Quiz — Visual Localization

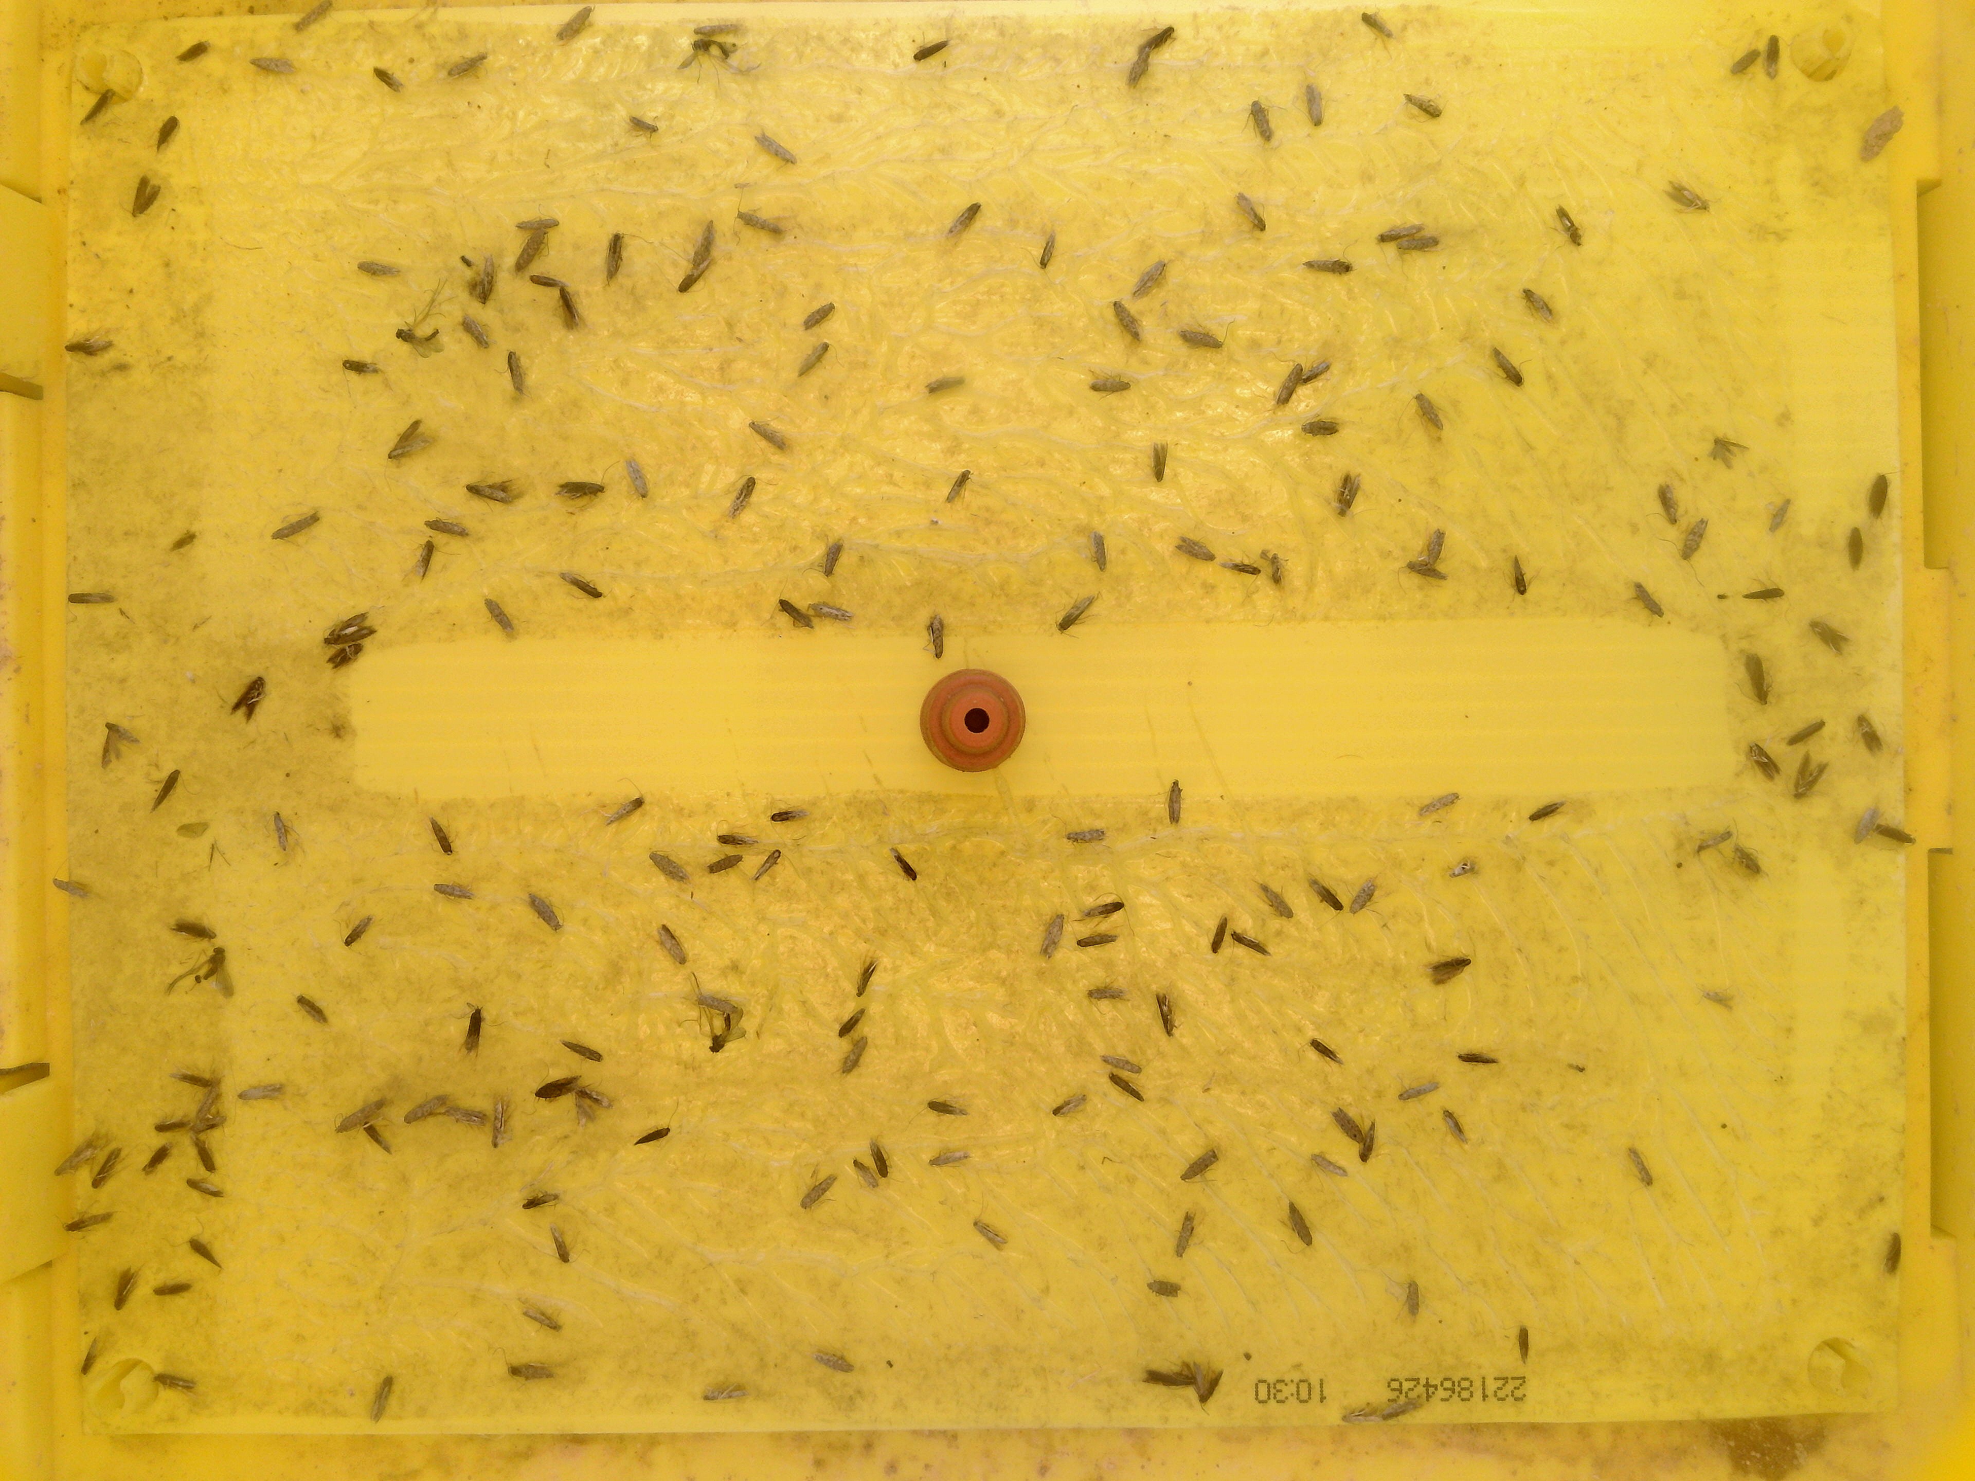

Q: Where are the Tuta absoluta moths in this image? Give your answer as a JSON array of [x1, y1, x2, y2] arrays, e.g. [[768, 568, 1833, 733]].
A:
[[1557, 205, 1585, 247], [946, 199, 987, 244], [1174, 317, 1226, 355], [235, 1077, 288, 1107], [292, 0, 336, 35], [1066, 821, 1116, 851], [326, 607, 374, 664], [1121, 60, 1153, 87], [1233, 192, 1267, 233], [1745, 652, 1778, 706], [727, 475, 756, 520], [812, 1345, 859, 1378], [136, 1144, 171, 1176], [747, 416, 789, 455], [1303, 80, 1331, 133], [1658, 481, 1681, 526], [368, 60, 402, 91], [1248, 97, 1276, 143], [361, 258, 399, 278], [1628, 1142, 1658, 1190], [296, 994, 335, 1032], [1253, 881, 1292, 920], [1148, 439, 1171, 483], [170, 527, 211, 565], [1728, 42, 1764, 80], [923, 1143, 968, 1172], [1088, 380, 1135, 397], [1360, 10, 1401, 49], [766, 807, 810, 830], [944, 467, 972, 505], [509, 357, 533, 400], [711, 824, 756, 847], [243, 57, 293, 76], [919, 611, 940, 656], [1506, 558, 1529, 605], [690, 989, 748, 1027], [779, 597, 815, 640], [532, 265, 580, 294], [61, 1210, 117, 1234], [1376, 220, 1428, 245], [852, 955, 876, 998], [852, 1156, 883, 1194], [1868, 821, 1925, 852], [435, 872, 470, 905], [102, 712, 132, 772], [1859, 713, 1898, 757], [392, 420, 429, 465], [1306, 1037, 1342, 1071], [75, 1338, 92, 1387], [1349, 878, 1381, 919], [1884, 1238, 1909, 1274], [185, 1172, 229, 1199], [518, 1190, 562, 1218], [462, 308, 492, 339], [1039, 225, 1062, 272], [553, 479, 606, 511], [888, 845, 919, 883], [260, 810, 293, 852], [433, 46, 486, 81], [1105, 1080, 1151, 1108], [1280, 1201, 1308, 1246], [1166, 780, 1189, 834], [743, 212, 794, 234], [1732, 842, 1761, 883], [625, 1125, 672, 1151], [551, 9, 595, 43], [1304, 416, 1342, 437], [76, 92, 114, 134], [815, 540, 851, 571], [1793, 752, 1827, 800], [1056, 591, 1097, 633], [1190, 1153, 1221, 1200], [1529, 797, 1576, 828], [1405, 86, 1445, 118], [1447, 854, 1480, 877], [1782, 717, 1822, 748], [1030, 911, 1068, 958], [137, 117, 175, 158], [522, 1299, 557, 1333], [652, 920, 686, 961], [1119, 303, 1144, 350], [173, 917, 219, 937], [1409, 238, 1453, 254], [647, 854, 689, 882], [232, 675, 266, 723], [866, 1140, 891, 1179], [1283, 364, 1298, 409], [1143, 1359, 1192, 1392], [626, 456, 656, 503], [1359, 1120, 1390, 1165], [698, 858, 744, 886], [1203, 920, 1228, 962], [795, 353, 826, 383], [1306, 878, 1343, 917], [189, 1132, 221, 1169], [338, 910, 377, 950], [150, 1279, 198, 1304], [83, 1147, 123, 1190], [1845, 528, 1866, 571], [805, 308, 840, 329], [1423, 528, 1453, 575], [752, 850, 785, 891], [1093, 1046, 1139, 1077], [923, 371, 982, 397], [405, 535, 435, 587], [171, 1057, 220, 1091], [1809, 618, 1851, 657], [512, 234, 548, 273], [1194, 1364, 1238, 1410], [64, 320, 122, 354], [1130, 260, 1169, 304], [188, 1234, 230, 1275], [1071, 903, 1112, 937], [149, 770, 184, 811], [528, 890, 565, 938], [510, 1361, 565, 1390], [1179, 532, 1220, 562], [401, 1080, 446, 1129], [1415, 795, 1461, 822], [1309, 1148, 1346, 1179], [1870, 478, 1903, 531], [911, 32, 947, 62], [554, 570, 602, 601], [1746, 740, 1780, 782], [1457, 1049, 1498, 1069], [559, 1034, 608, 1061], [1512, 1327, 1532, 1381], [129, 176, 157, 220], [1492, 344, 1523, 388], [1333, 471, 1361, 518], [270, 506, 325, 545], [460, 1004, 483, 1057], [360, 1369, 398, 1427], [349, 354, 396, 377], [49, 874, 91, 899], [1229, 925, 1266, 958], [360, 1120, 396, 1157], [141, 1112, 225, 1134], [427, 516, 470, 538], [1090, 526, 1110, 575], [169, 32, 209, 70], [1059, 1095, 1090, 1118], [1400, 1287, 1416, 1334], [1440, 1116, 1476, 1147], [69, 584, 120, 610], [1681, 507, 1707, 556], [837, 1038, 866, 1082], [1395, 1079, 1444, 1098], [485, 595, 516, 634], [1425, 955, 1470, 987], [971, 1217, 1012, 1254], [676, 250, 711, 293], [1666, 177, 1718, 213], [156, 1368, 200, 1395], [516, 211, 559, 233], [548, 1220, 575, 1270], [105, 1261, 139, 1316], [702, 1369, 753, 1405], [1298, 359, 1334, 383], [1522, 284, 1560, 320], [1744, 579, 1784, 605], [800, 1170, 838, 1210], [750, 127, 804, 164], [1219, 557, 1262, 578], [442, 1109, 492, 1137], [1766, 494, 1794, 535], [462, 469, 518, 511], [1626, 574, 1668, 620], [1153, 988, 1178, 1043], [1308, 252, 1356, 280], [603, 231, 625, 285], [598, 793, 647, 832], [1416, 405, 1450, 450], [421, 811, 455, 851], [1169, 1205, 1199, 1271], [1136, 25, 1177, 58], [920, 1099, 973, 1120], [473, 251, 496, 306], [835, 1008, 869, 1041], [1763, 33, 1796, 81], [1083, 981, 1133, 1007], [532, 1075, 586, 1102]]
